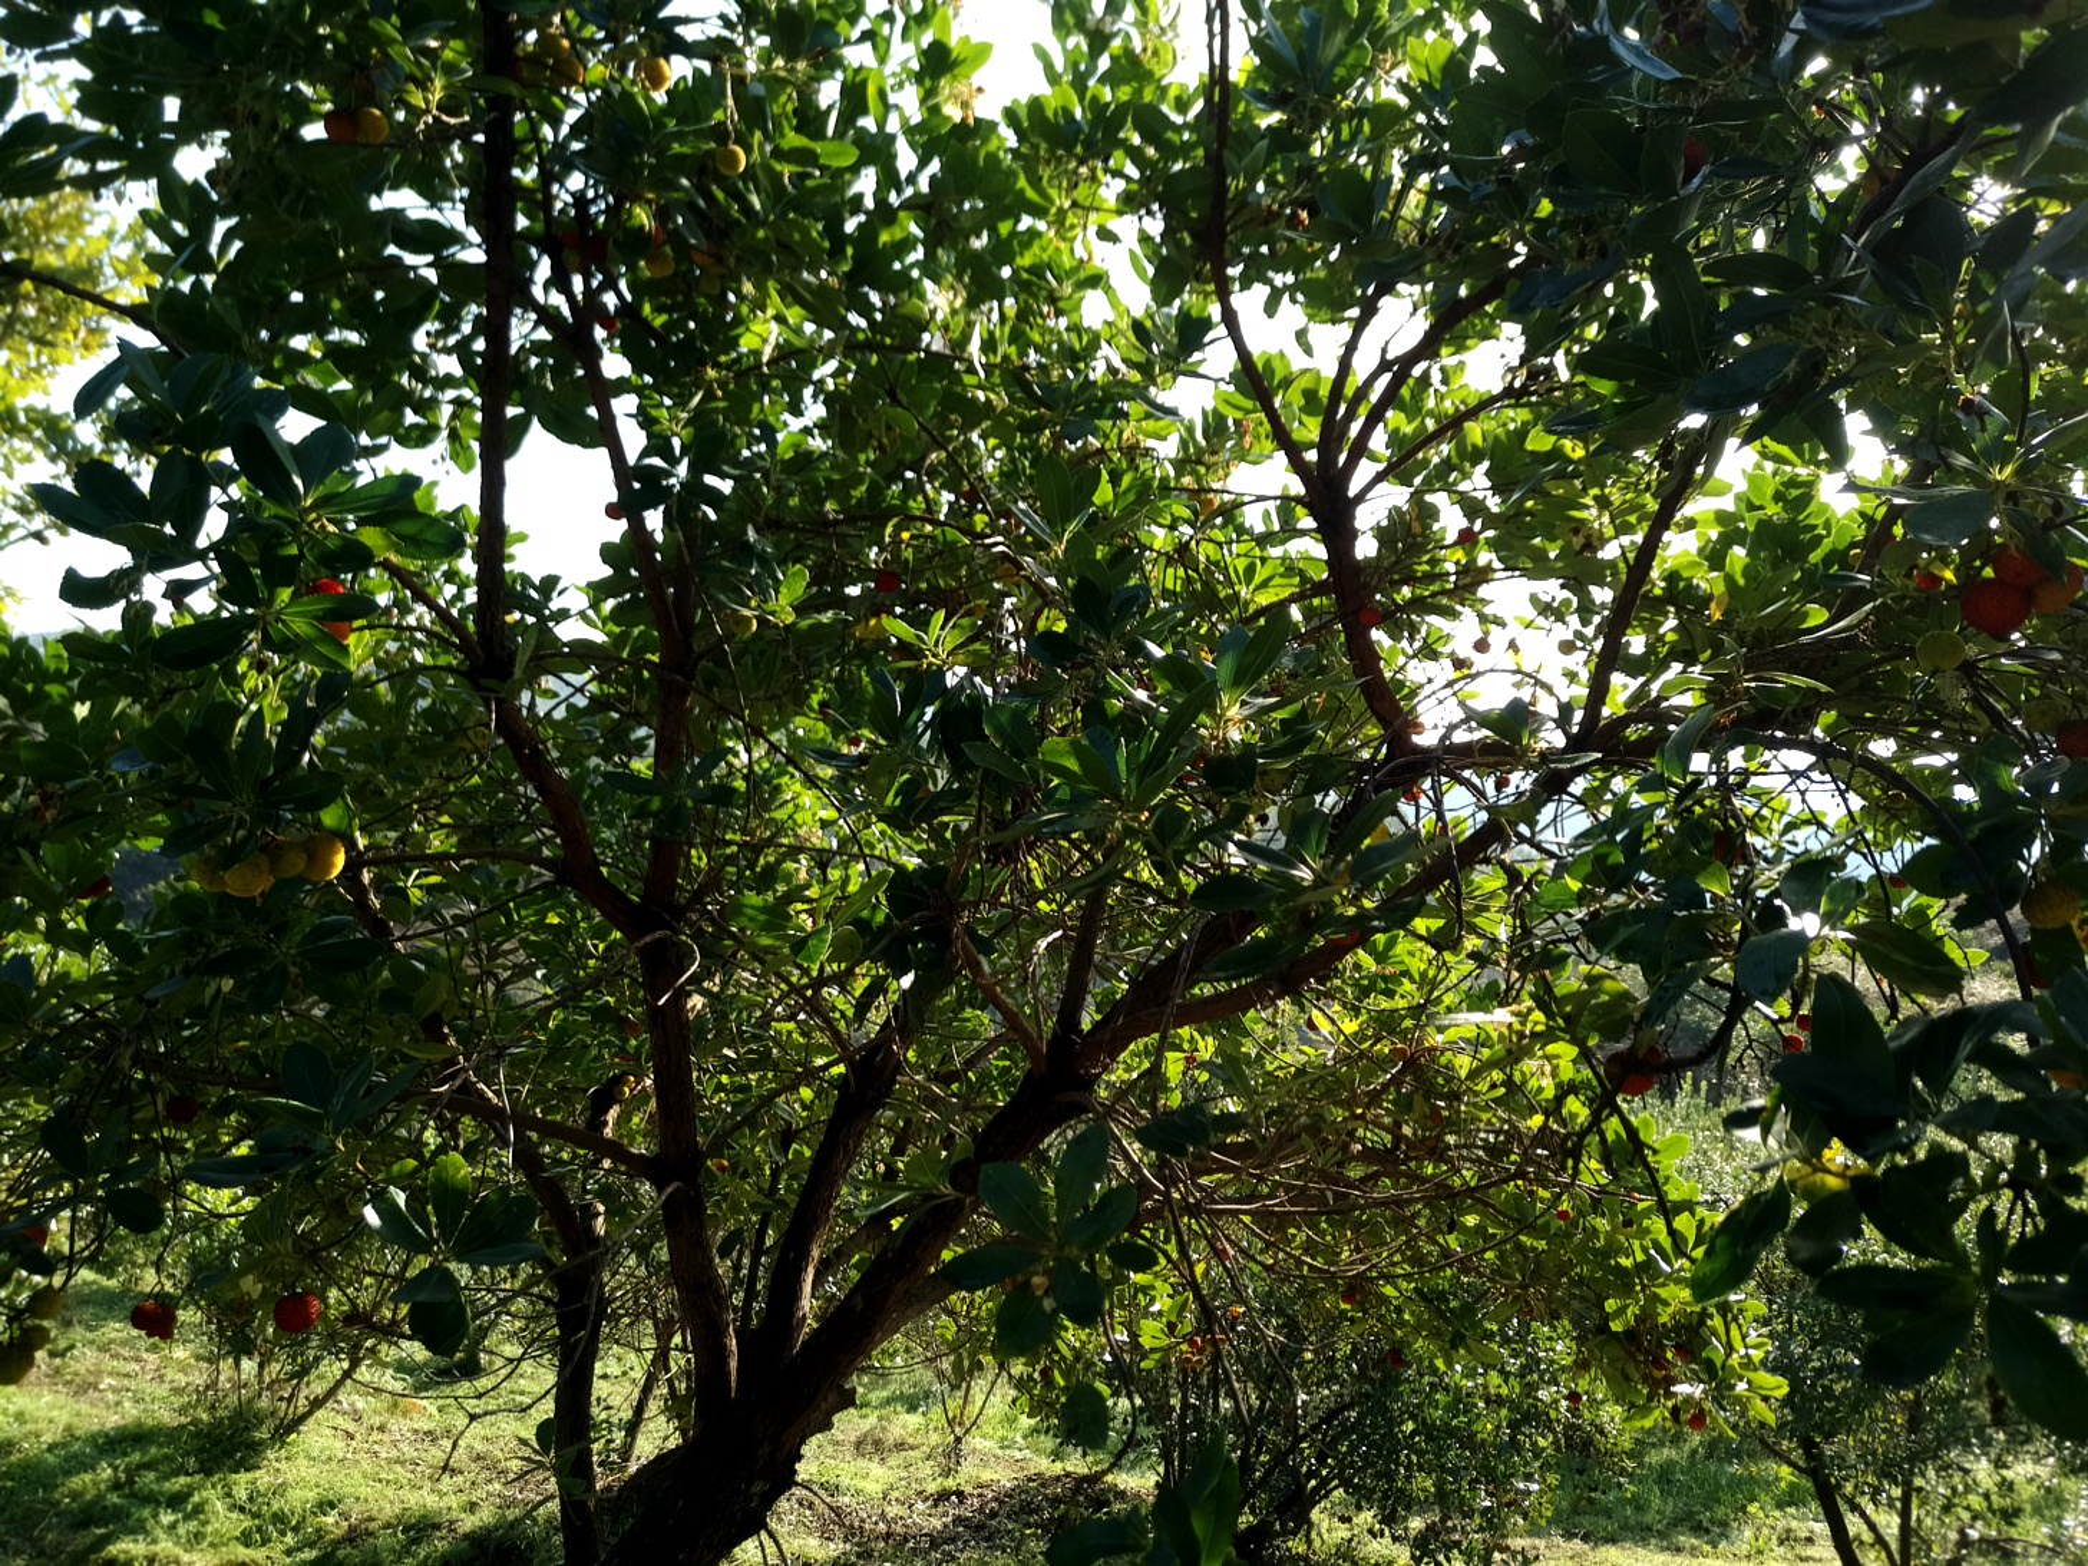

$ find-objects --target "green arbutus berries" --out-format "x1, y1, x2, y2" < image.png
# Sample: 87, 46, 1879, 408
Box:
0, 1341, 36, 1389
1848, 547, 1865, 565
1559, 639, 1577, 656
18, 1323, 49, 1352
1916, 628, 1966, 670
29, 1285, 62, 1322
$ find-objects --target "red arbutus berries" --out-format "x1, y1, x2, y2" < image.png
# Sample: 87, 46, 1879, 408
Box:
1189, 1337, 1201, 1349
1495, 775, 1512, 788
1184, 1055, 1197, 1064
873, 568, 903, 595
1457, 527, 1476, 545
1992, 537, 2047, 587
1689, 1413, 1706, 1429
1960, 577, 2031, 631
1676, 129, 1714, 176
324, 109, 360, 143
2031, 559, 2085, 611
1797, 1013, 1815, 1031
1568, 1392, 1582, 1404
1557, 1209, 1570, 1221
306, 574, 346, 603
1604, 1051, 1656, 1095
1341, 1290, 1357, 1306
274, 1291, 322, 1334
1428, 1108, 1444, 1125
1913, 566, 1942, 591
1357, 607, 1383, 628
1391, 1359, 1404, 1371
1385, 1348, 1400, 1360
849, 736, 861, 747
1403, 783, 1423, 803
1783, 1034, 1806, 1053
131, 1301, 175, 1332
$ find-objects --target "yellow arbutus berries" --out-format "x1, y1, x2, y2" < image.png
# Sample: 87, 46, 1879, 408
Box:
1472, 637, 1491, 654
301, 833, 345, 883
1409, 718, 1426, 735
1389, 1043, 1412, 1064
539, 33, 570, 63
713, 1158, 731, 1172
2023, 882, 2079, 929
1861, 161, 1900, 201
997, 561, 1023, 582
645, 250, 676, 280
633, 53, 671, 95
359, 108, 389, 143
552, 57, 585, 86
614, 1084, 630, 1100
715, 144, 748, 176
1193, 1357, 1205, 1368
1204, 1334, 1218, 1352
316, 612, 353, 645
622, 1074, 636, 1089
188, 853, 227, 892
264, 839, 308, 877
1216, 1333, 1226, 1345
222, 850, 269, 889
1181, 1354, 1194, 1367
